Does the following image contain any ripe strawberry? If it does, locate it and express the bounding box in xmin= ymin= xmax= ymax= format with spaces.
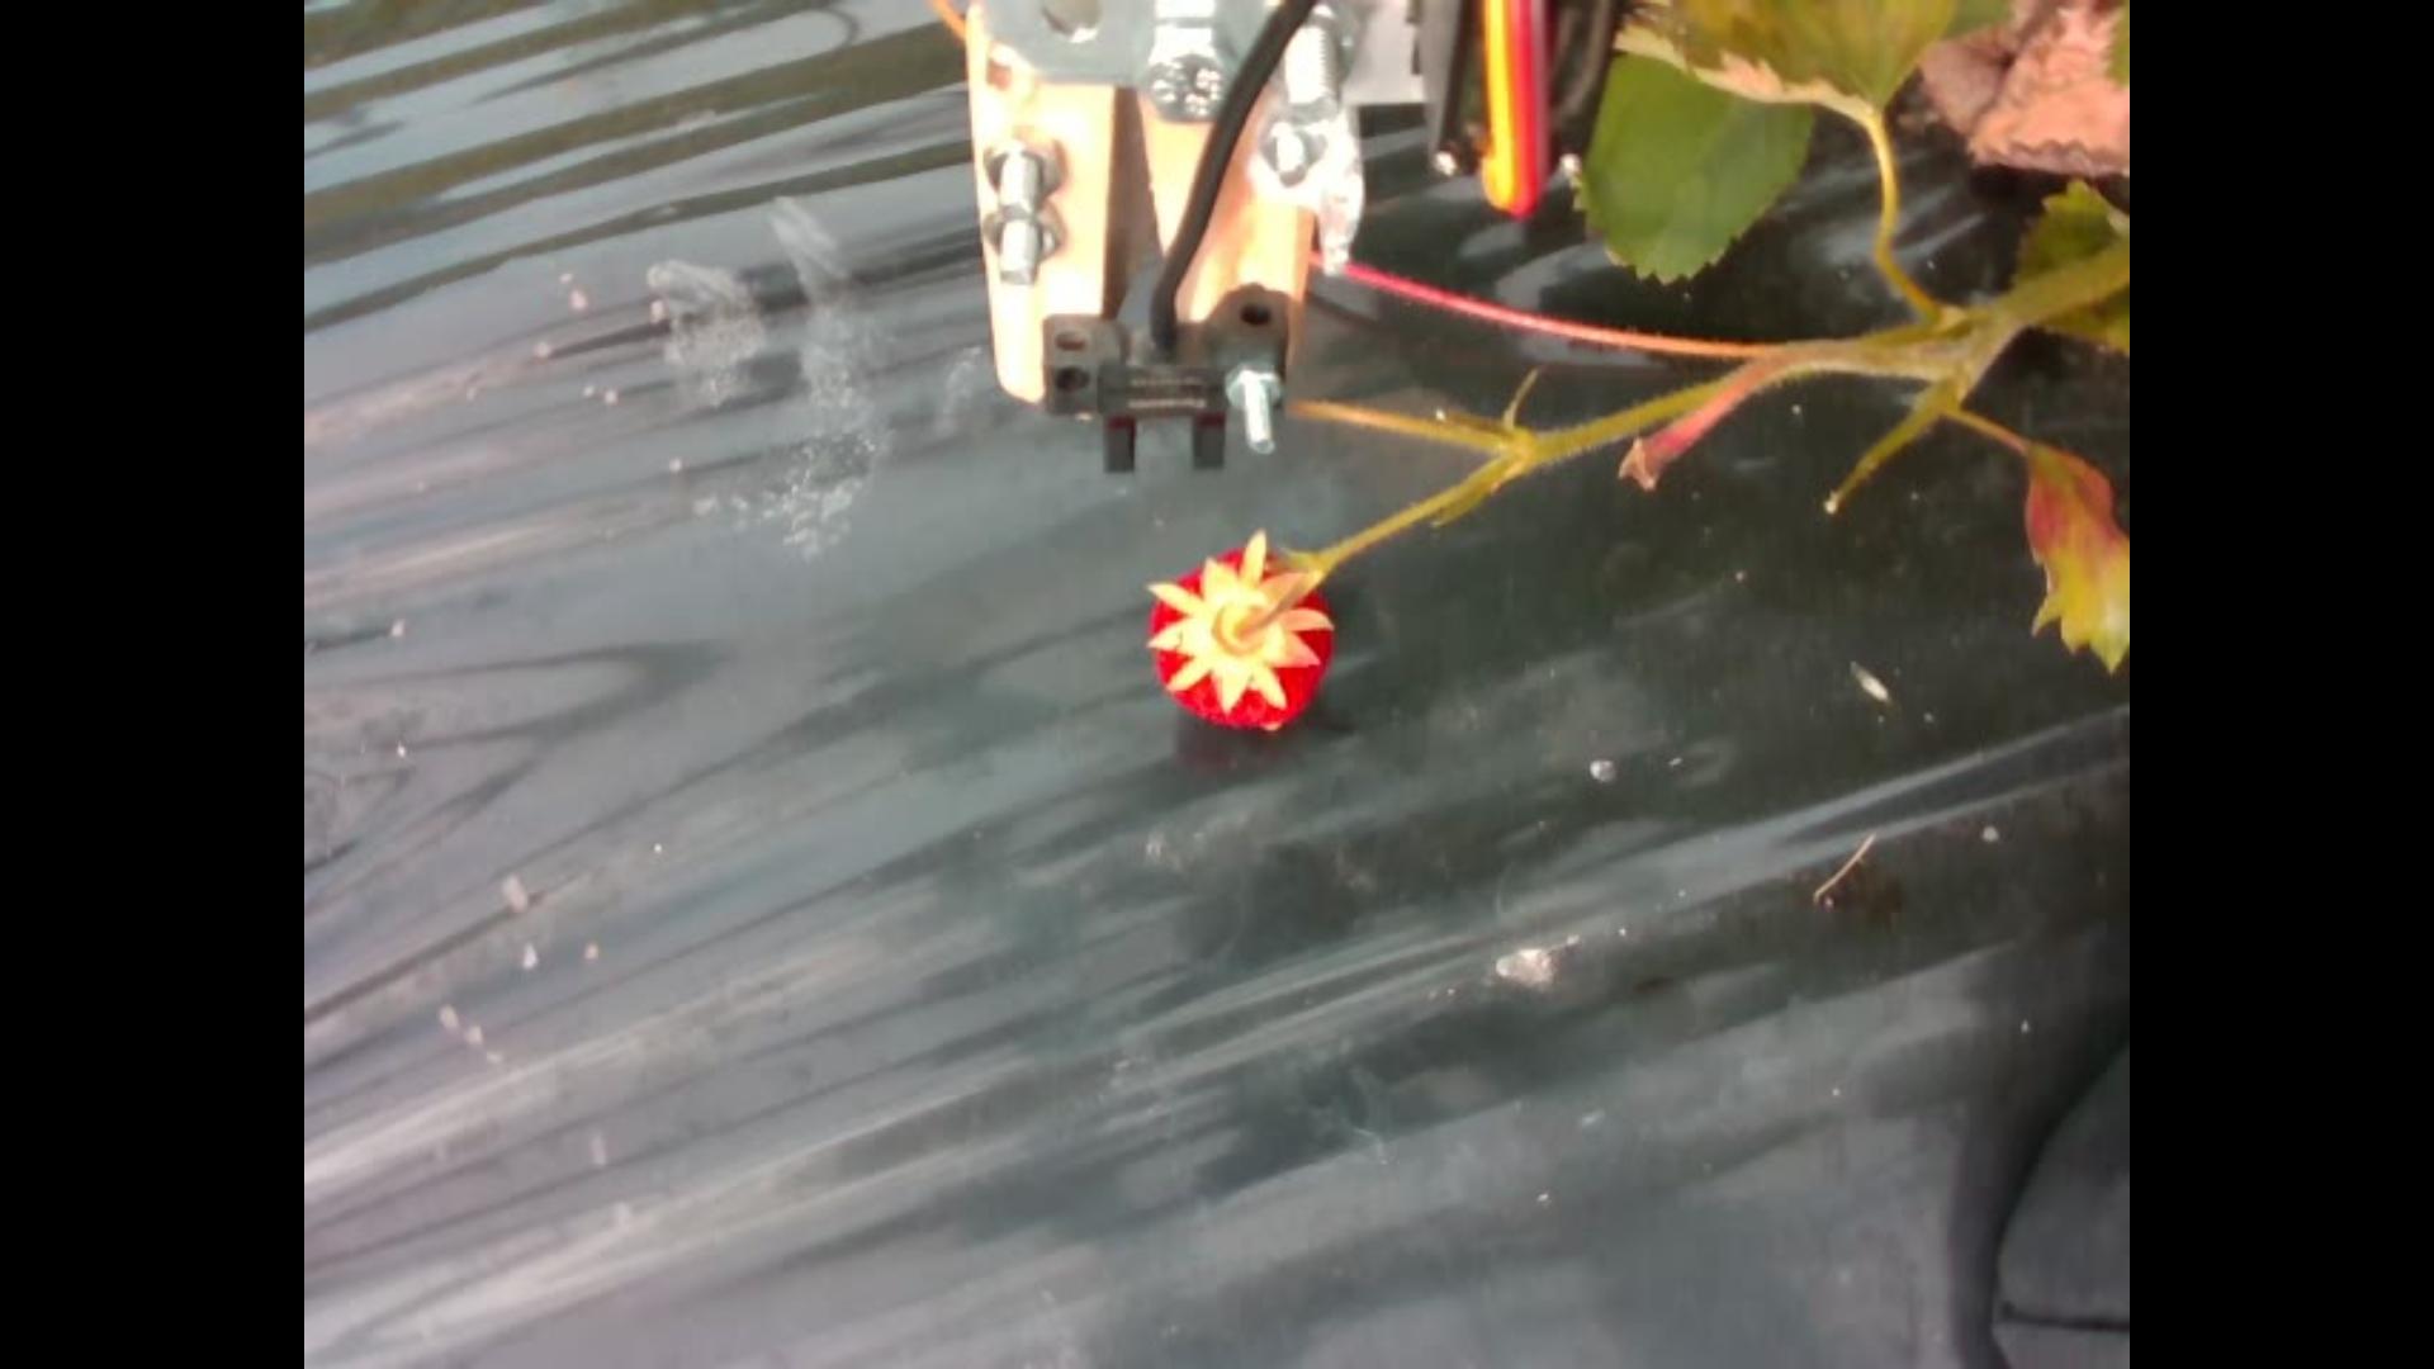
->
xmin=1122 ymin=544 xmax=1358 ymax=737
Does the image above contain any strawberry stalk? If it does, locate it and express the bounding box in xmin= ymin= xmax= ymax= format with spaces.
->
xmin=1230 ymin=459 xmax=1429 ymax=653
